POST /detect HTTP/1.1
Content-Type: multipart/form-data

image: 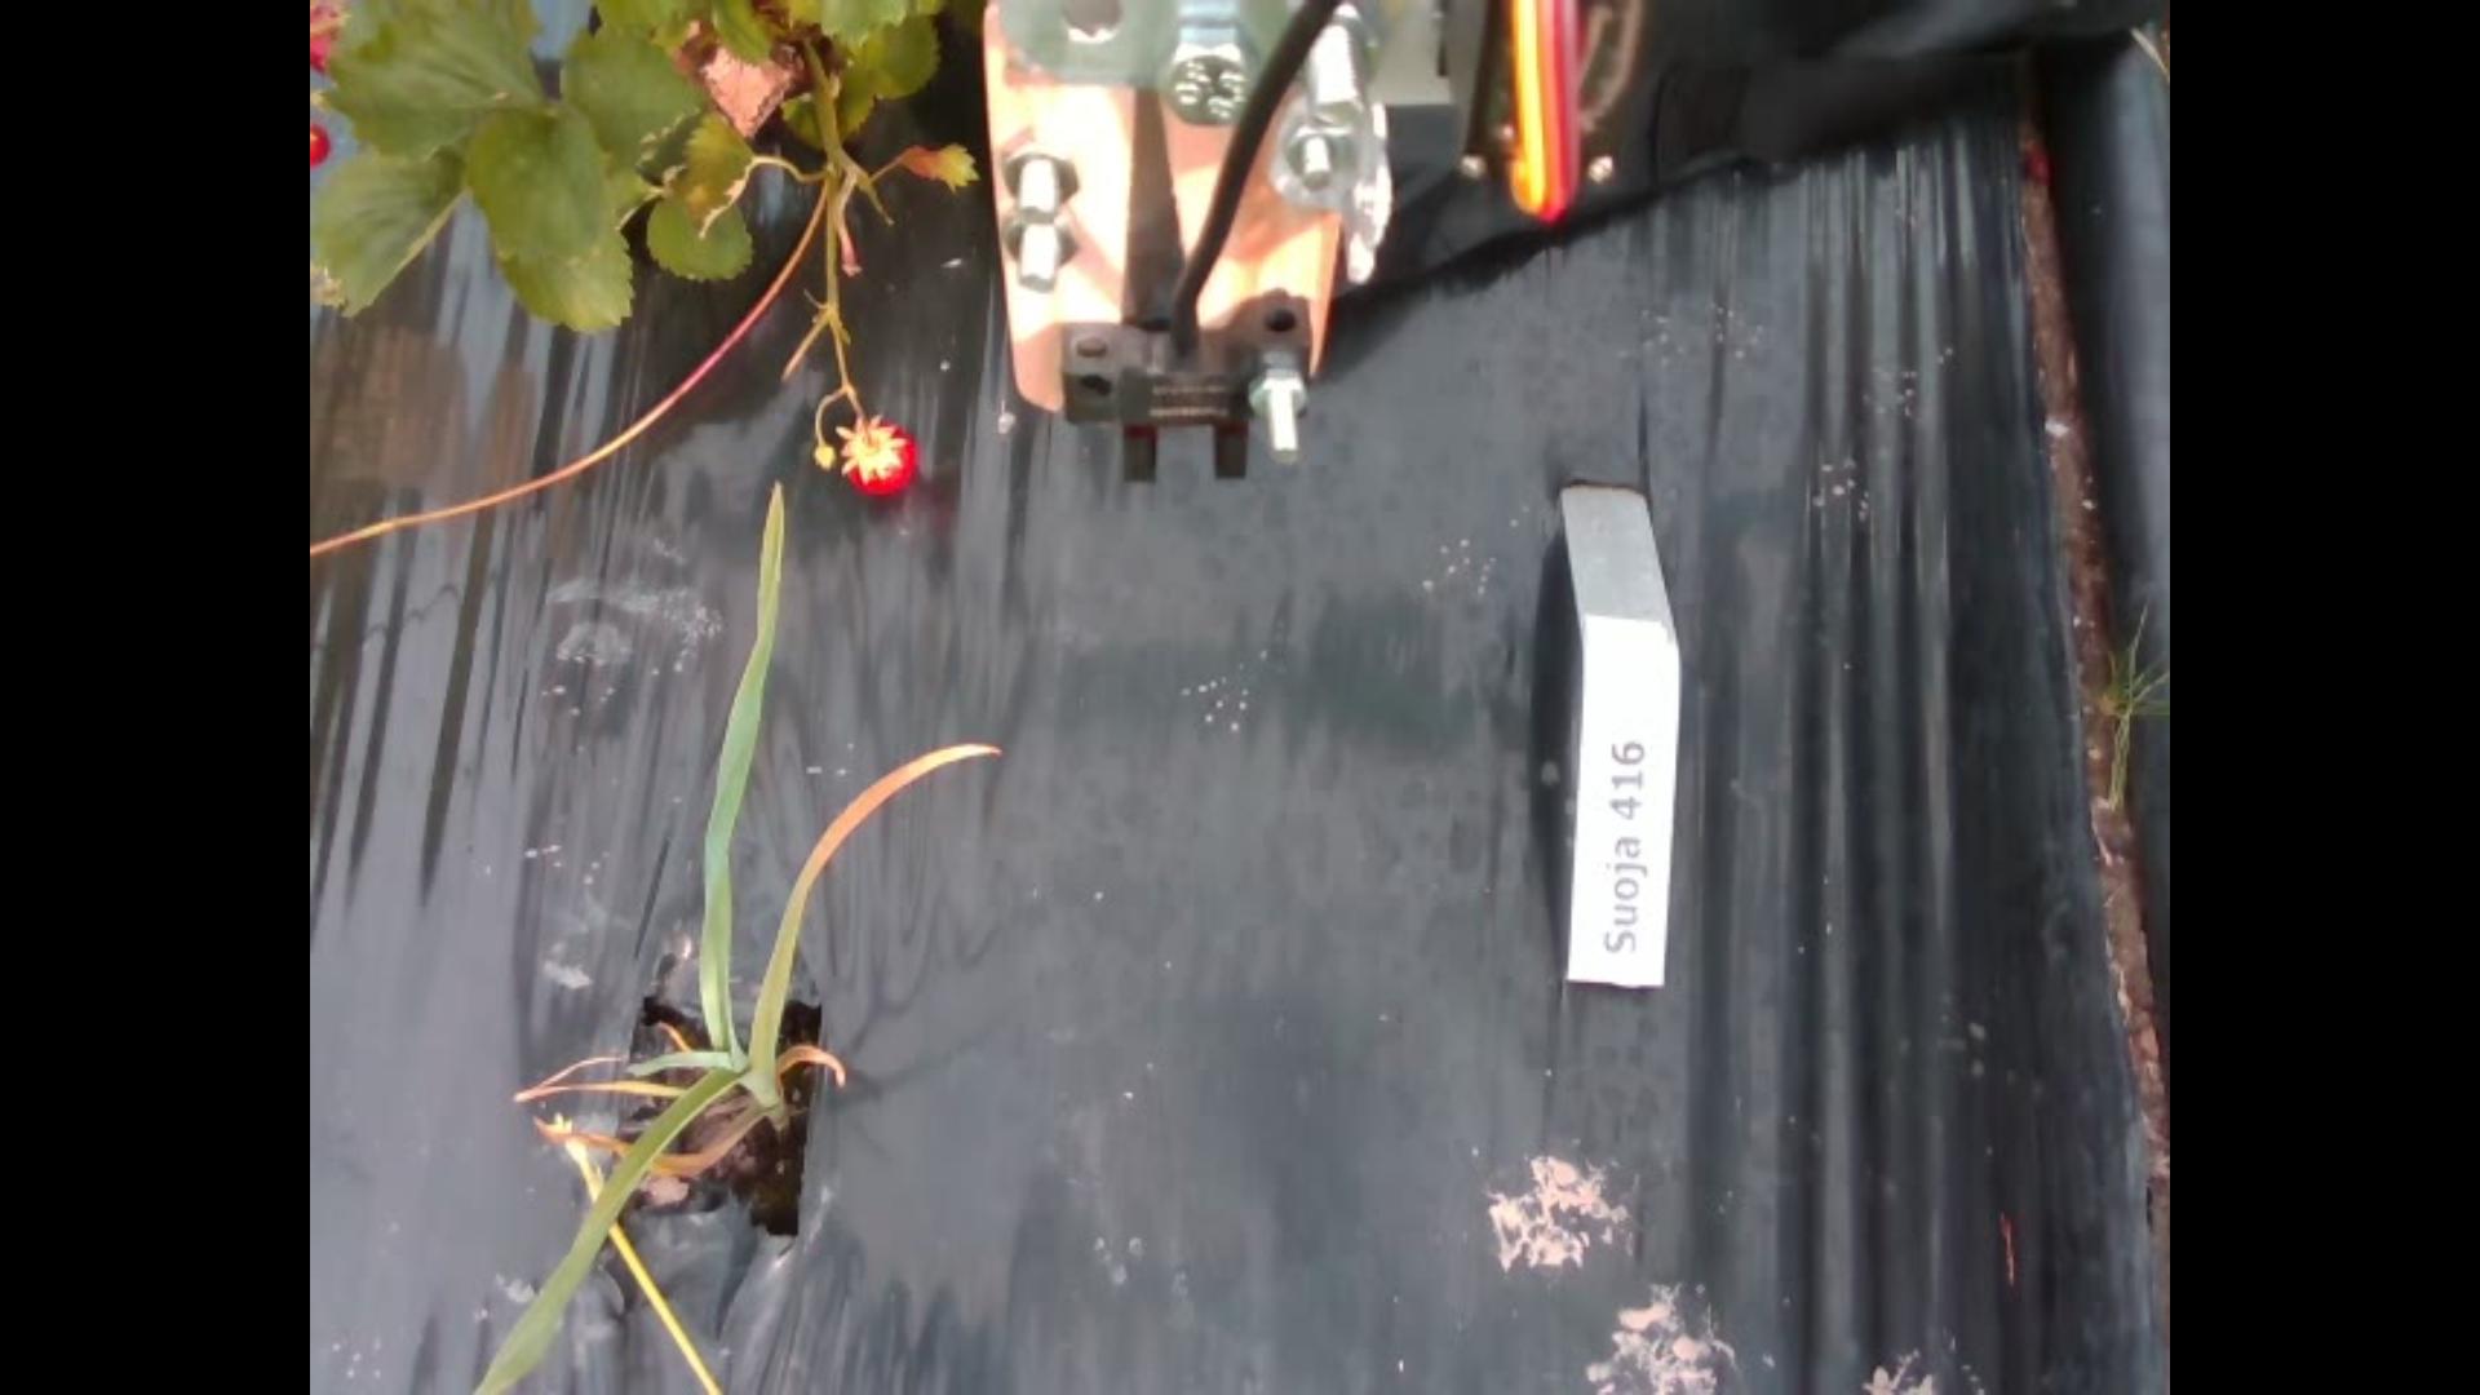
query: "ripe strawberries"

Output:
[820,420,937,525]
[306,117,331,178]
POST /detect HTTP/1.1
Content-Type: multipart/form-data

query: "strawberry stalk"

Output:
[833,349,877,444]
